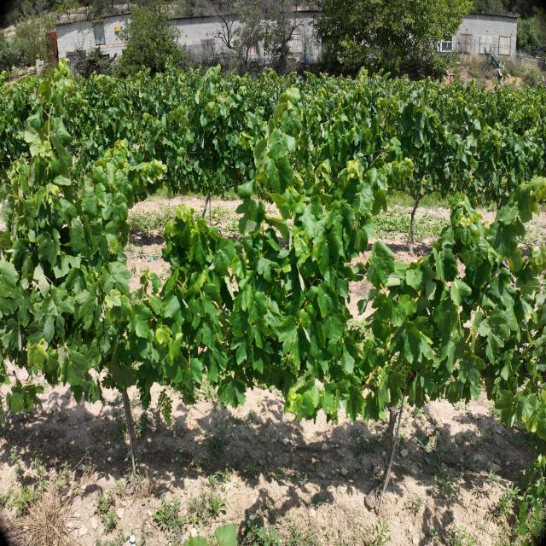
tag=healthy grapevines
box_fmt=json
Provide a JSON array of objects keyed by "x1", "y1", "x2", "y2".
[
  {"x1": 296, "y1": 193, "x2": 546, "y2": 520},
  {"x1": 0, "y1": 139, "x2": 294, "y2": 497}
]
